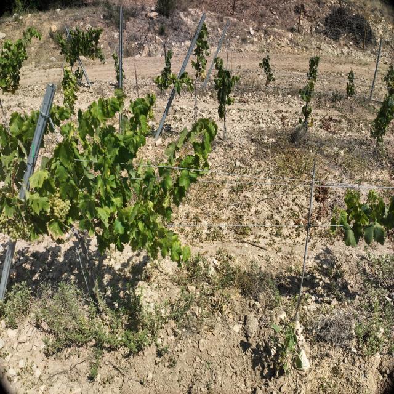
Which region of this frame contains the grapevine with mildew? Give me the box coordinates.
[0,95,222,324]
